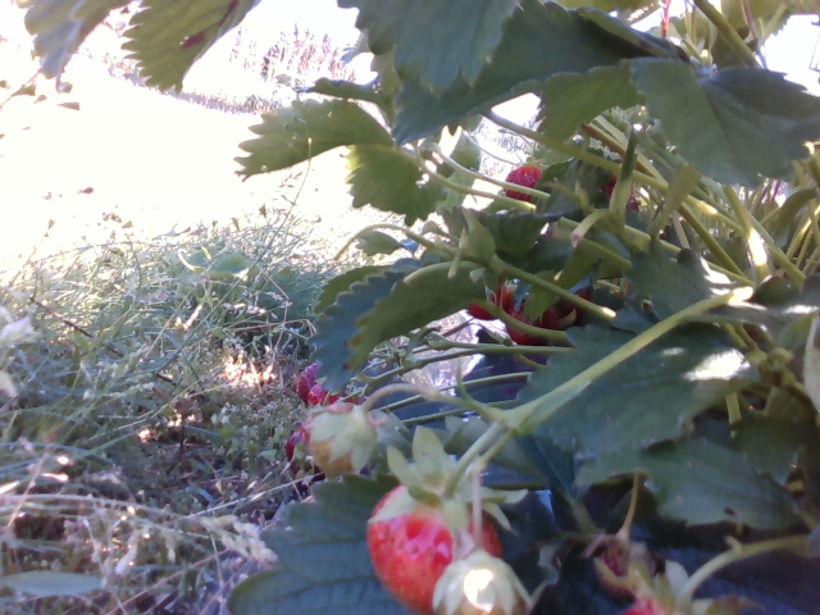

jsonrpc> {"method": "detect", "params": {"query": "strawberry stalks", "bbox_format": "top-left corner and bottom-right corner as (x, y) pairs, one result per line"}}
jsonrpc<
(419, 416), (509, 524)
(341, 357), (416, 409)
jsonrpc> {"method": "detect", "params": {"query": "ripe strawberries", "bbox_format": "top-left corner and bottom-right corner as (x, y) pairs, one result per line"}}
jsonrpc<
(368, 465), (513, 601)
(297, 350), (374, 422)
